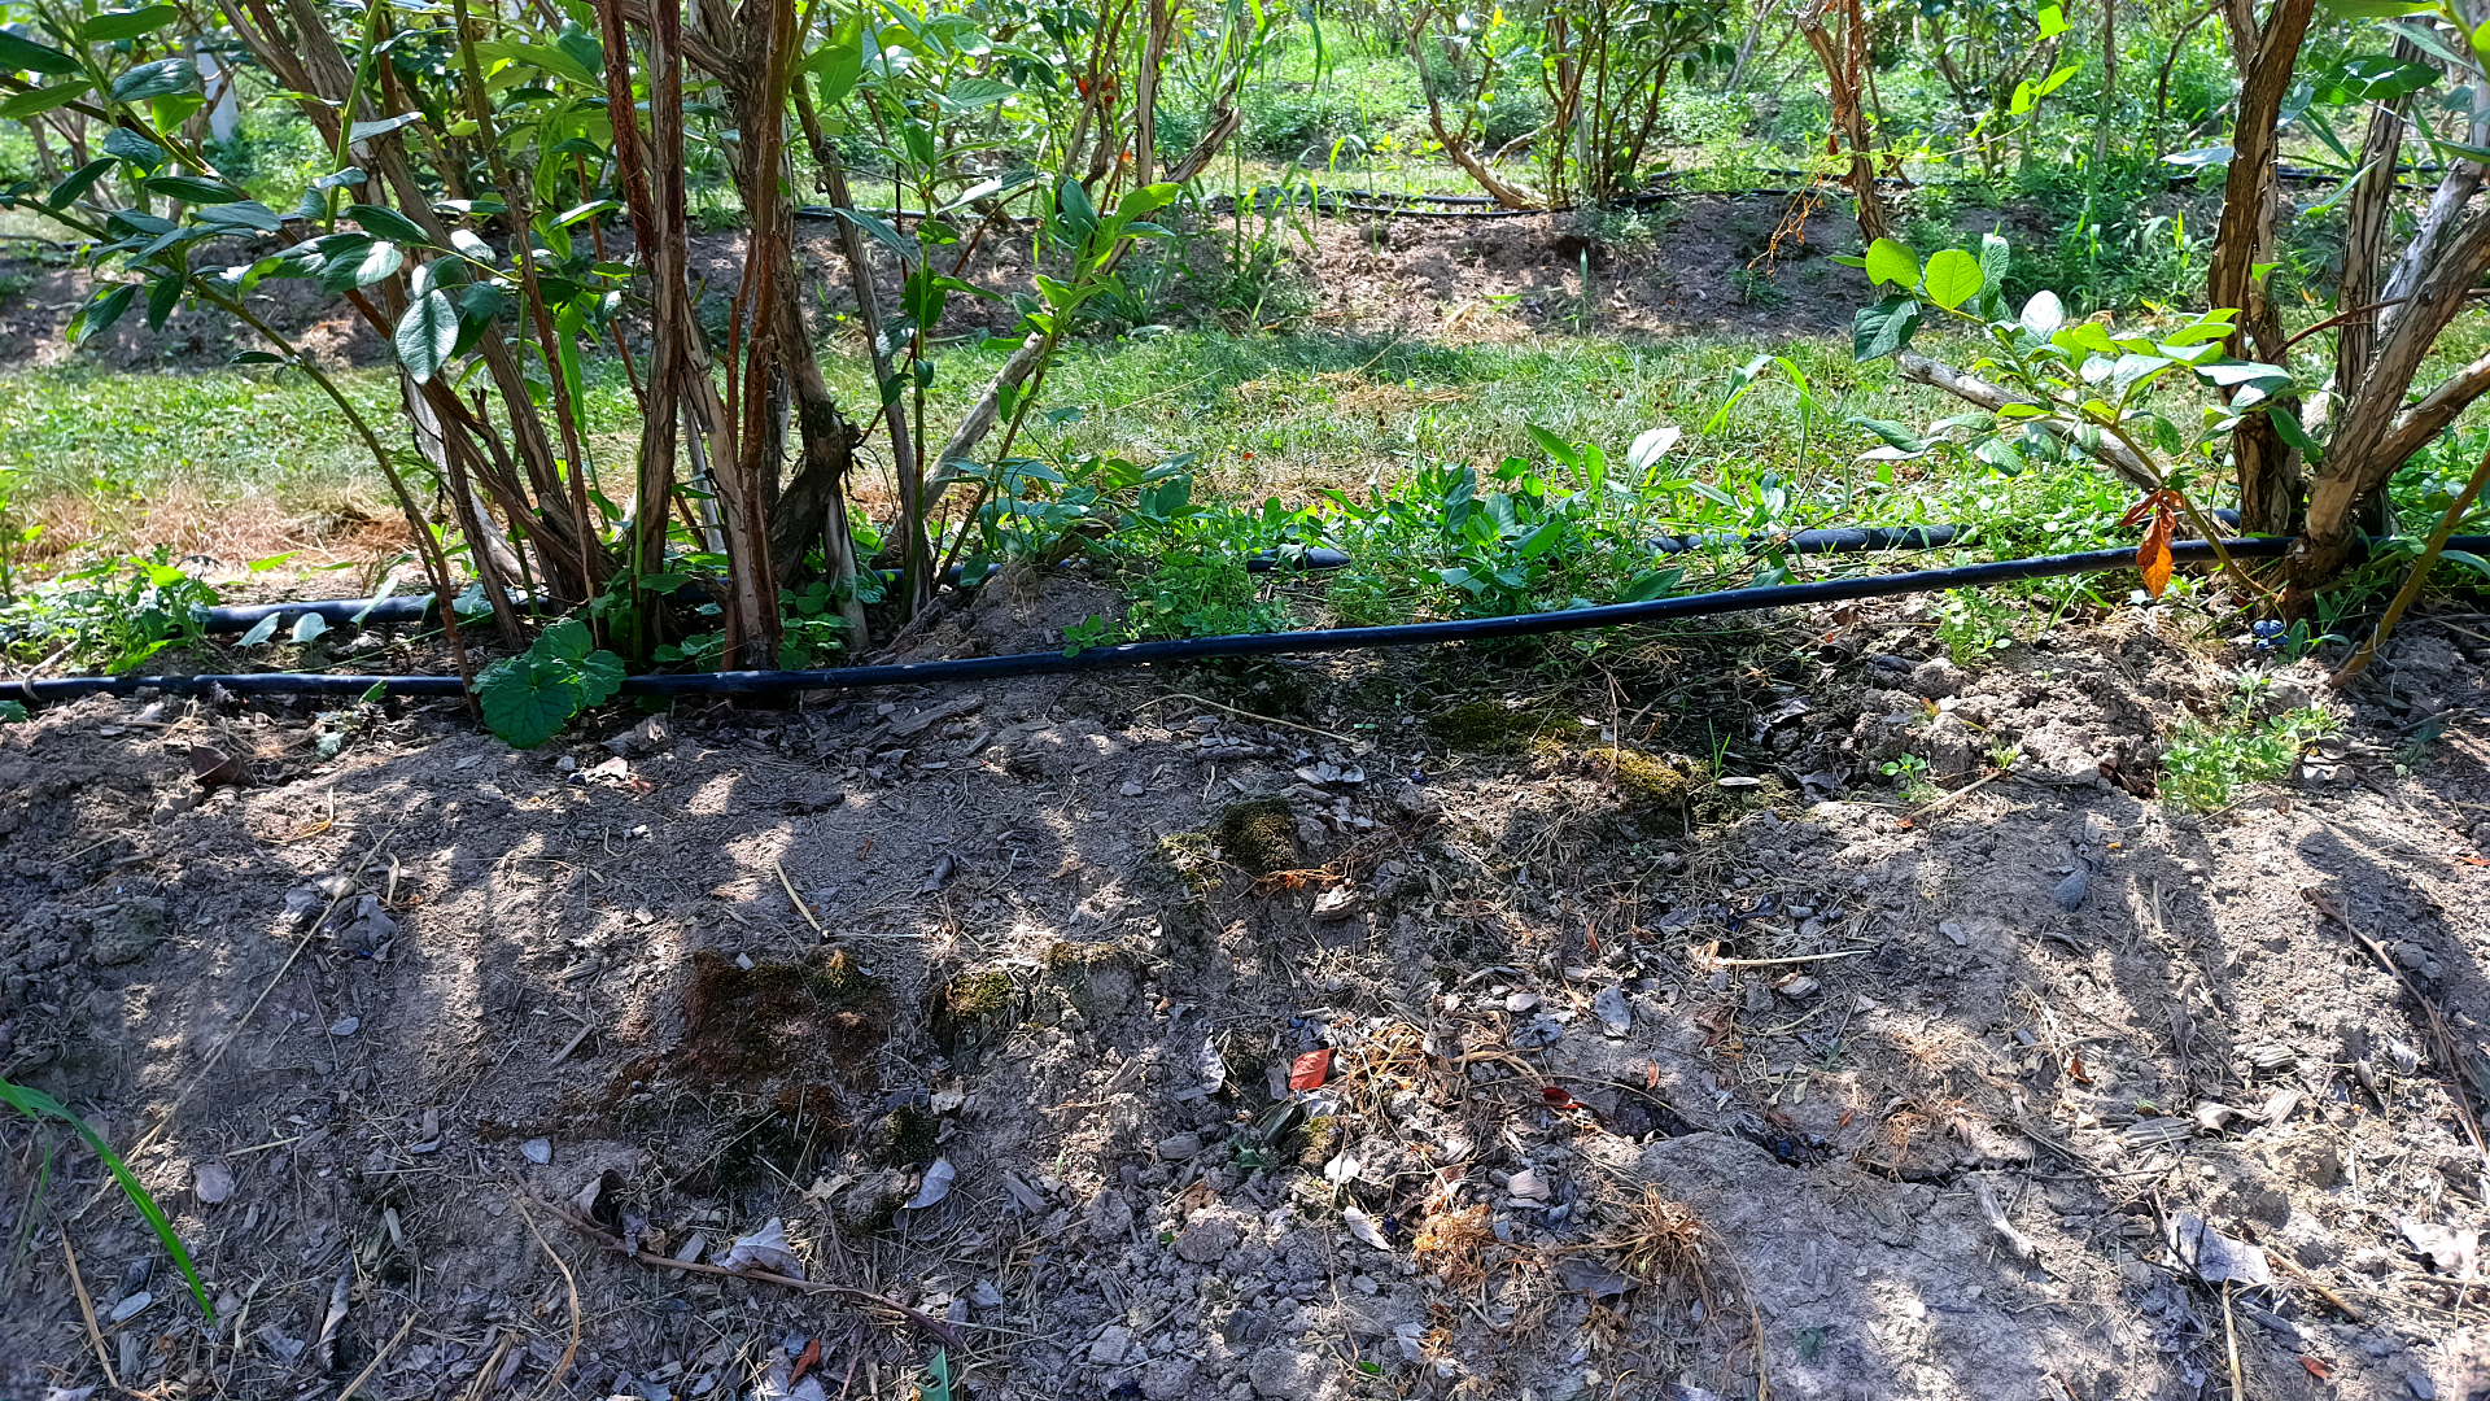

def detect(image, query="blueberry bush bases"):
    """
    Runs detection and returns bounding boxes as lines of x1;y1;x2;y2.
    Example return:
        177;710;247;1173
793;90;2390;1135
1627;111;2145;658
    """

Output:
1443;105;1694;274
331;376;1057;802
2080;298;2486;776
